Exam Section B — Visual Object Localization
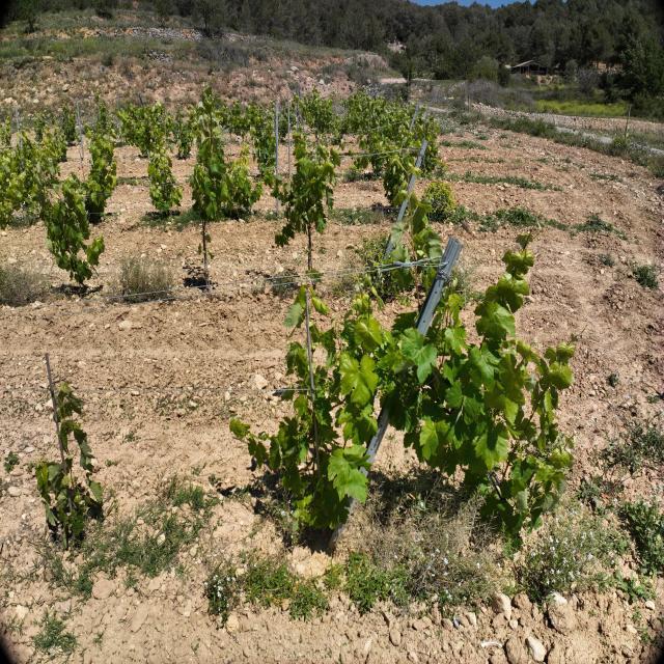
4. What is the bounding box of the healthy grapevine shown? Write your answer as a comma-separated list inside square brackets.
[224, 209, 583, 565]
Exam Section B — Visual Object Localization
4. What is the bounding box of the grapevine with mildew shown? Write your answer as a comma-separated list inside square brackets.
[27, 376, 114, 560]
